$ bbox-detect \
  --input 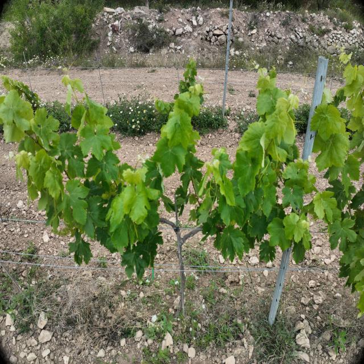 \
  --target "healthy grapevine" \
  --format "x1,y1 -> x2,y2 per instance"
1,64 -> 359,333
